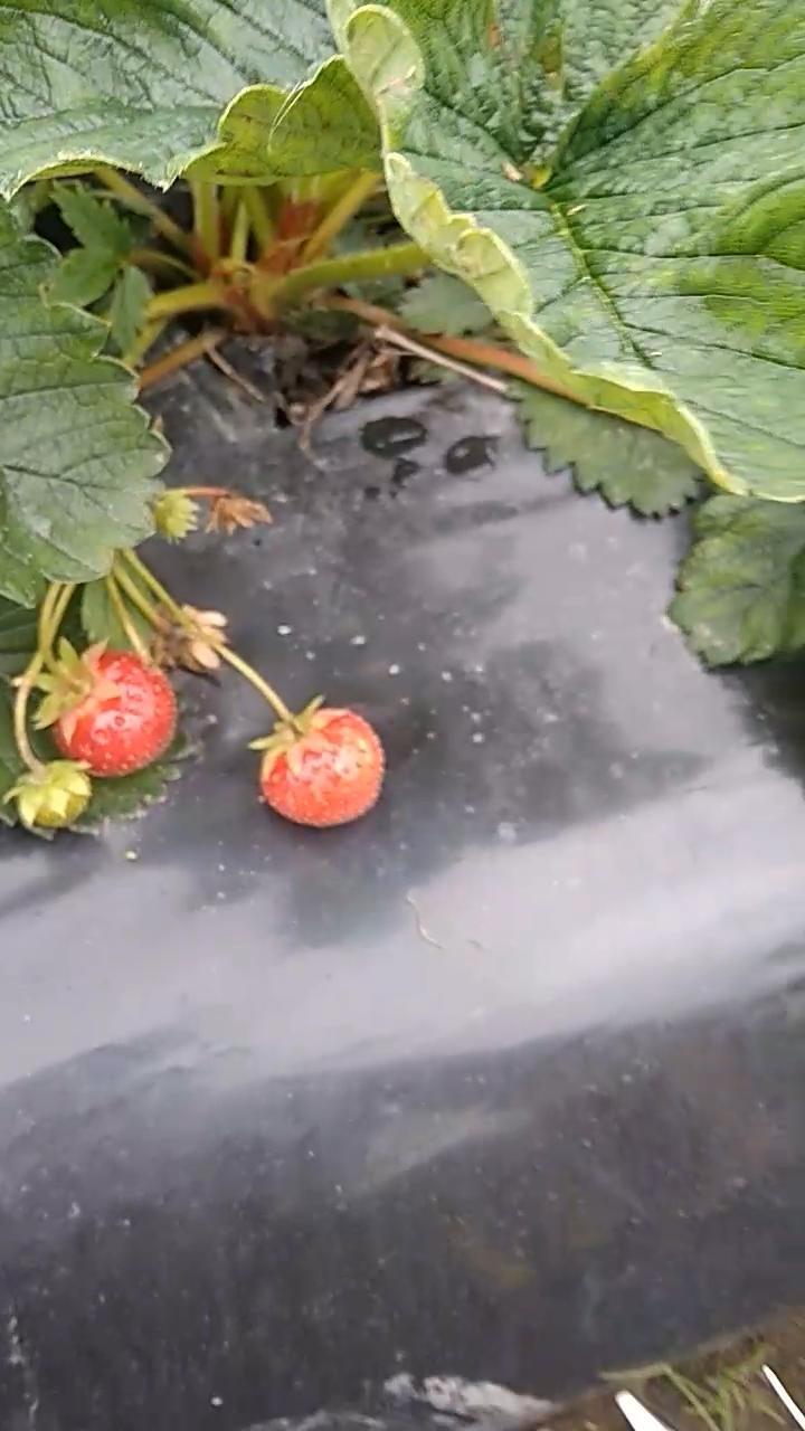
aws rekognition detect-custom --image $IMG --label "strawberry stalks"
[208,638,319,748]
[16,596,97,708]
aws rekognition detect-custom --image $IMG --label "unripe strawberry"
[8,764,92,832]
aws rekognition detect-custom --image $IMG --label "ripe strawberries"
[45,650,179,778]
[257,707,388,841]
